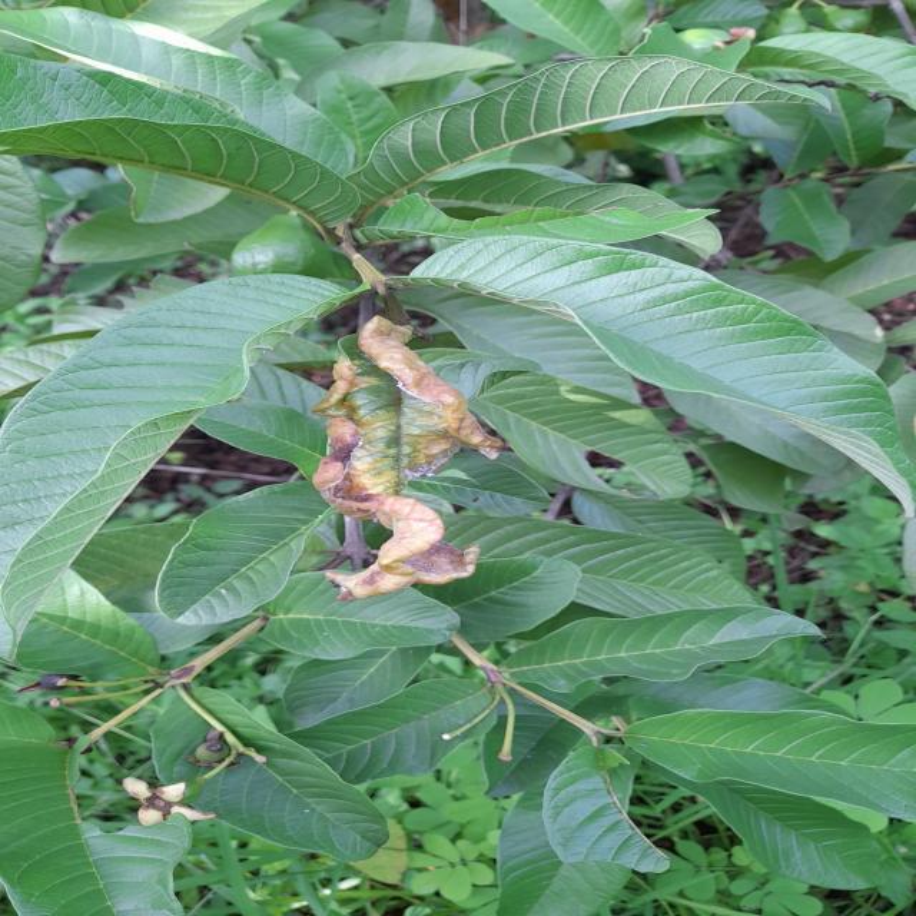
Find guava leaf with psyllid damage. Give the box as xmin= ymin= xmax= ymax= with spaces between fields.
xmin=278 ymin=308 xmax=527 ymax=599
